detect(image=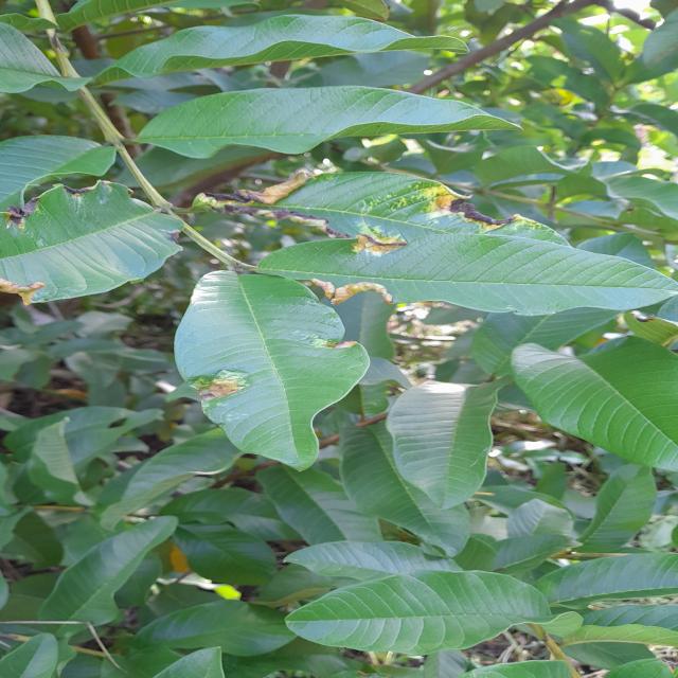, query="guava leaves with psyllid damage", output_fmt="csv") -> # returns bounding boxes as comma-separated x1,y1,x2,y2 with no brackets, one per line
166,254,376,473
232,224,678,313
